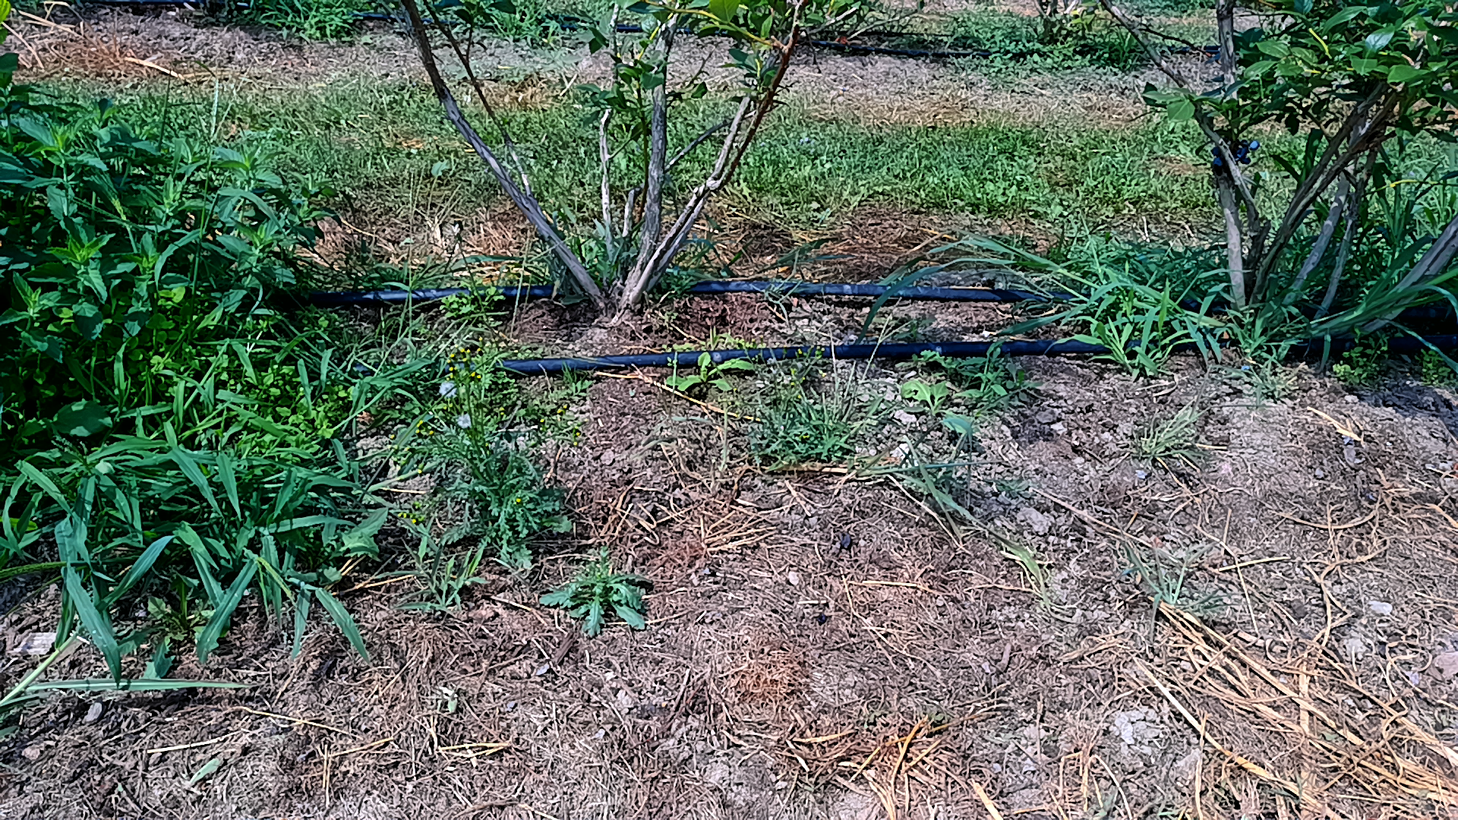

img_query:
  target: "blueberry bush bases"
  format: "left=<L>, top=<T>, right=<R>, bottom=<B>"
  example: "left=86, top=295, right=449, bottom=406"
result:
left=1027, top=0, right=1125, bottom=68
left=1161, top=166, right=1432, bottom=396
left=453, top=140, right=764, bottom=381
